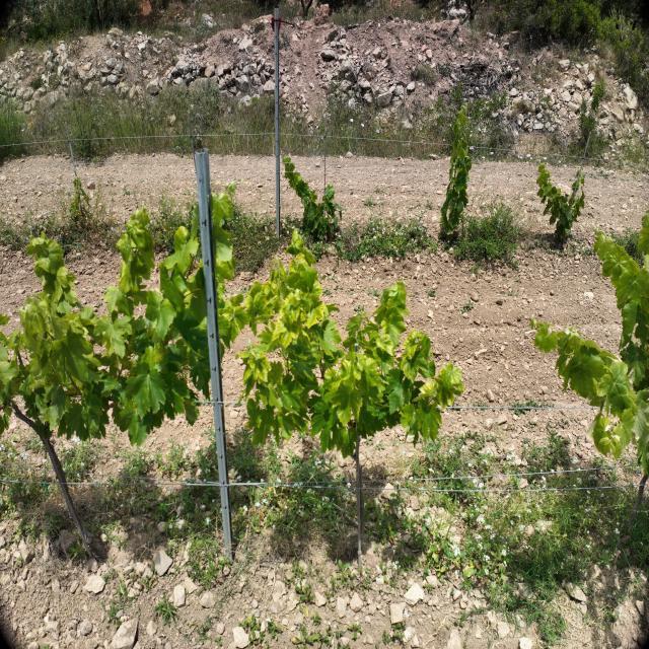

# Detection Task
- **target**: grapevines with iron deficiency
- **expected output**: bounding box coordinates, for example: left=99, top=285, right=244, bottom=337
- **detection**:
left=526, top=237, right=649, bottom=521
left=0, top=182, right=247, bottom=572
left=237, top=223, right=471, bottom=581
